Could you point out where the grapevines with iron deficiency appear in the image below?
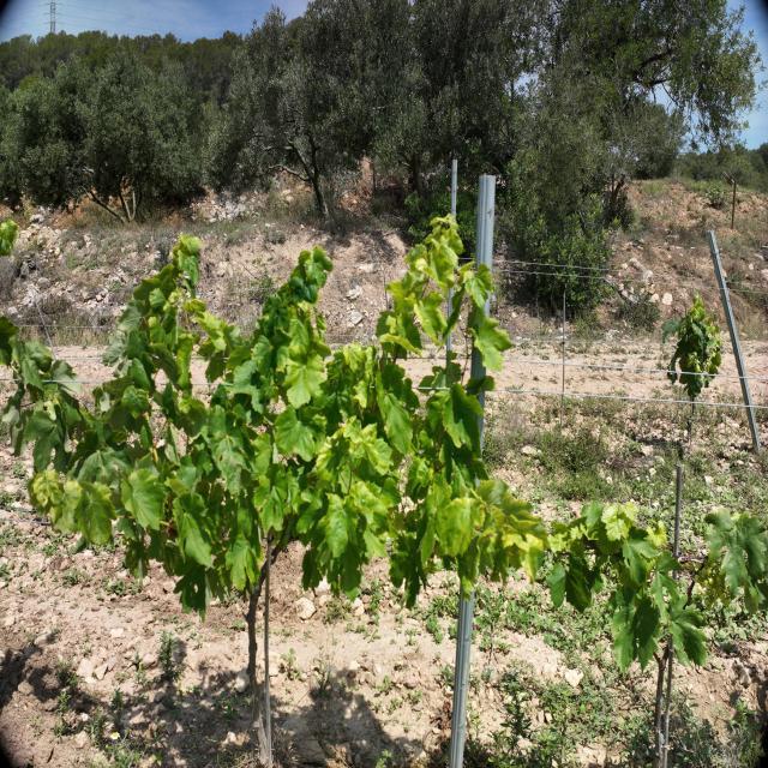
[7,228,545,768]
[547,474,768,768]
